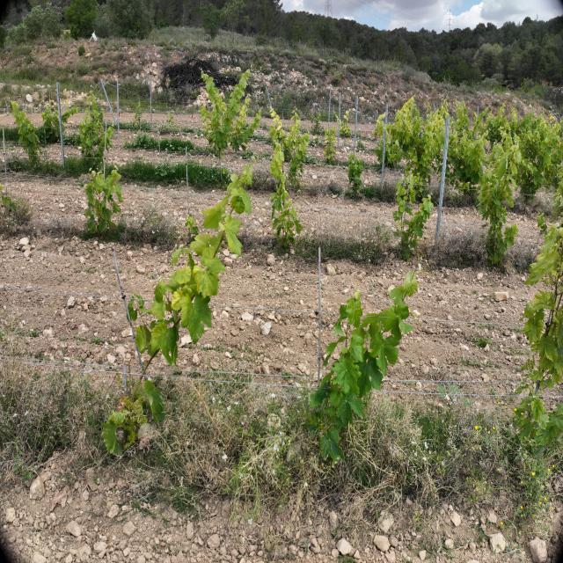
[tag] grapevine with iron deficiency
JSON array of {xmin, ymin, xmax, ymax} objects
[{"xmin": 111, "ymin": 157, "xmax": 256, "ymax": 443}]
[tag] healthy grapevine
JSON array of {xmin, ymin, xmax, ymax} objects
[{"xmin": 292, "ymin": 250, "xmax": 424, "ymax": 473}]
